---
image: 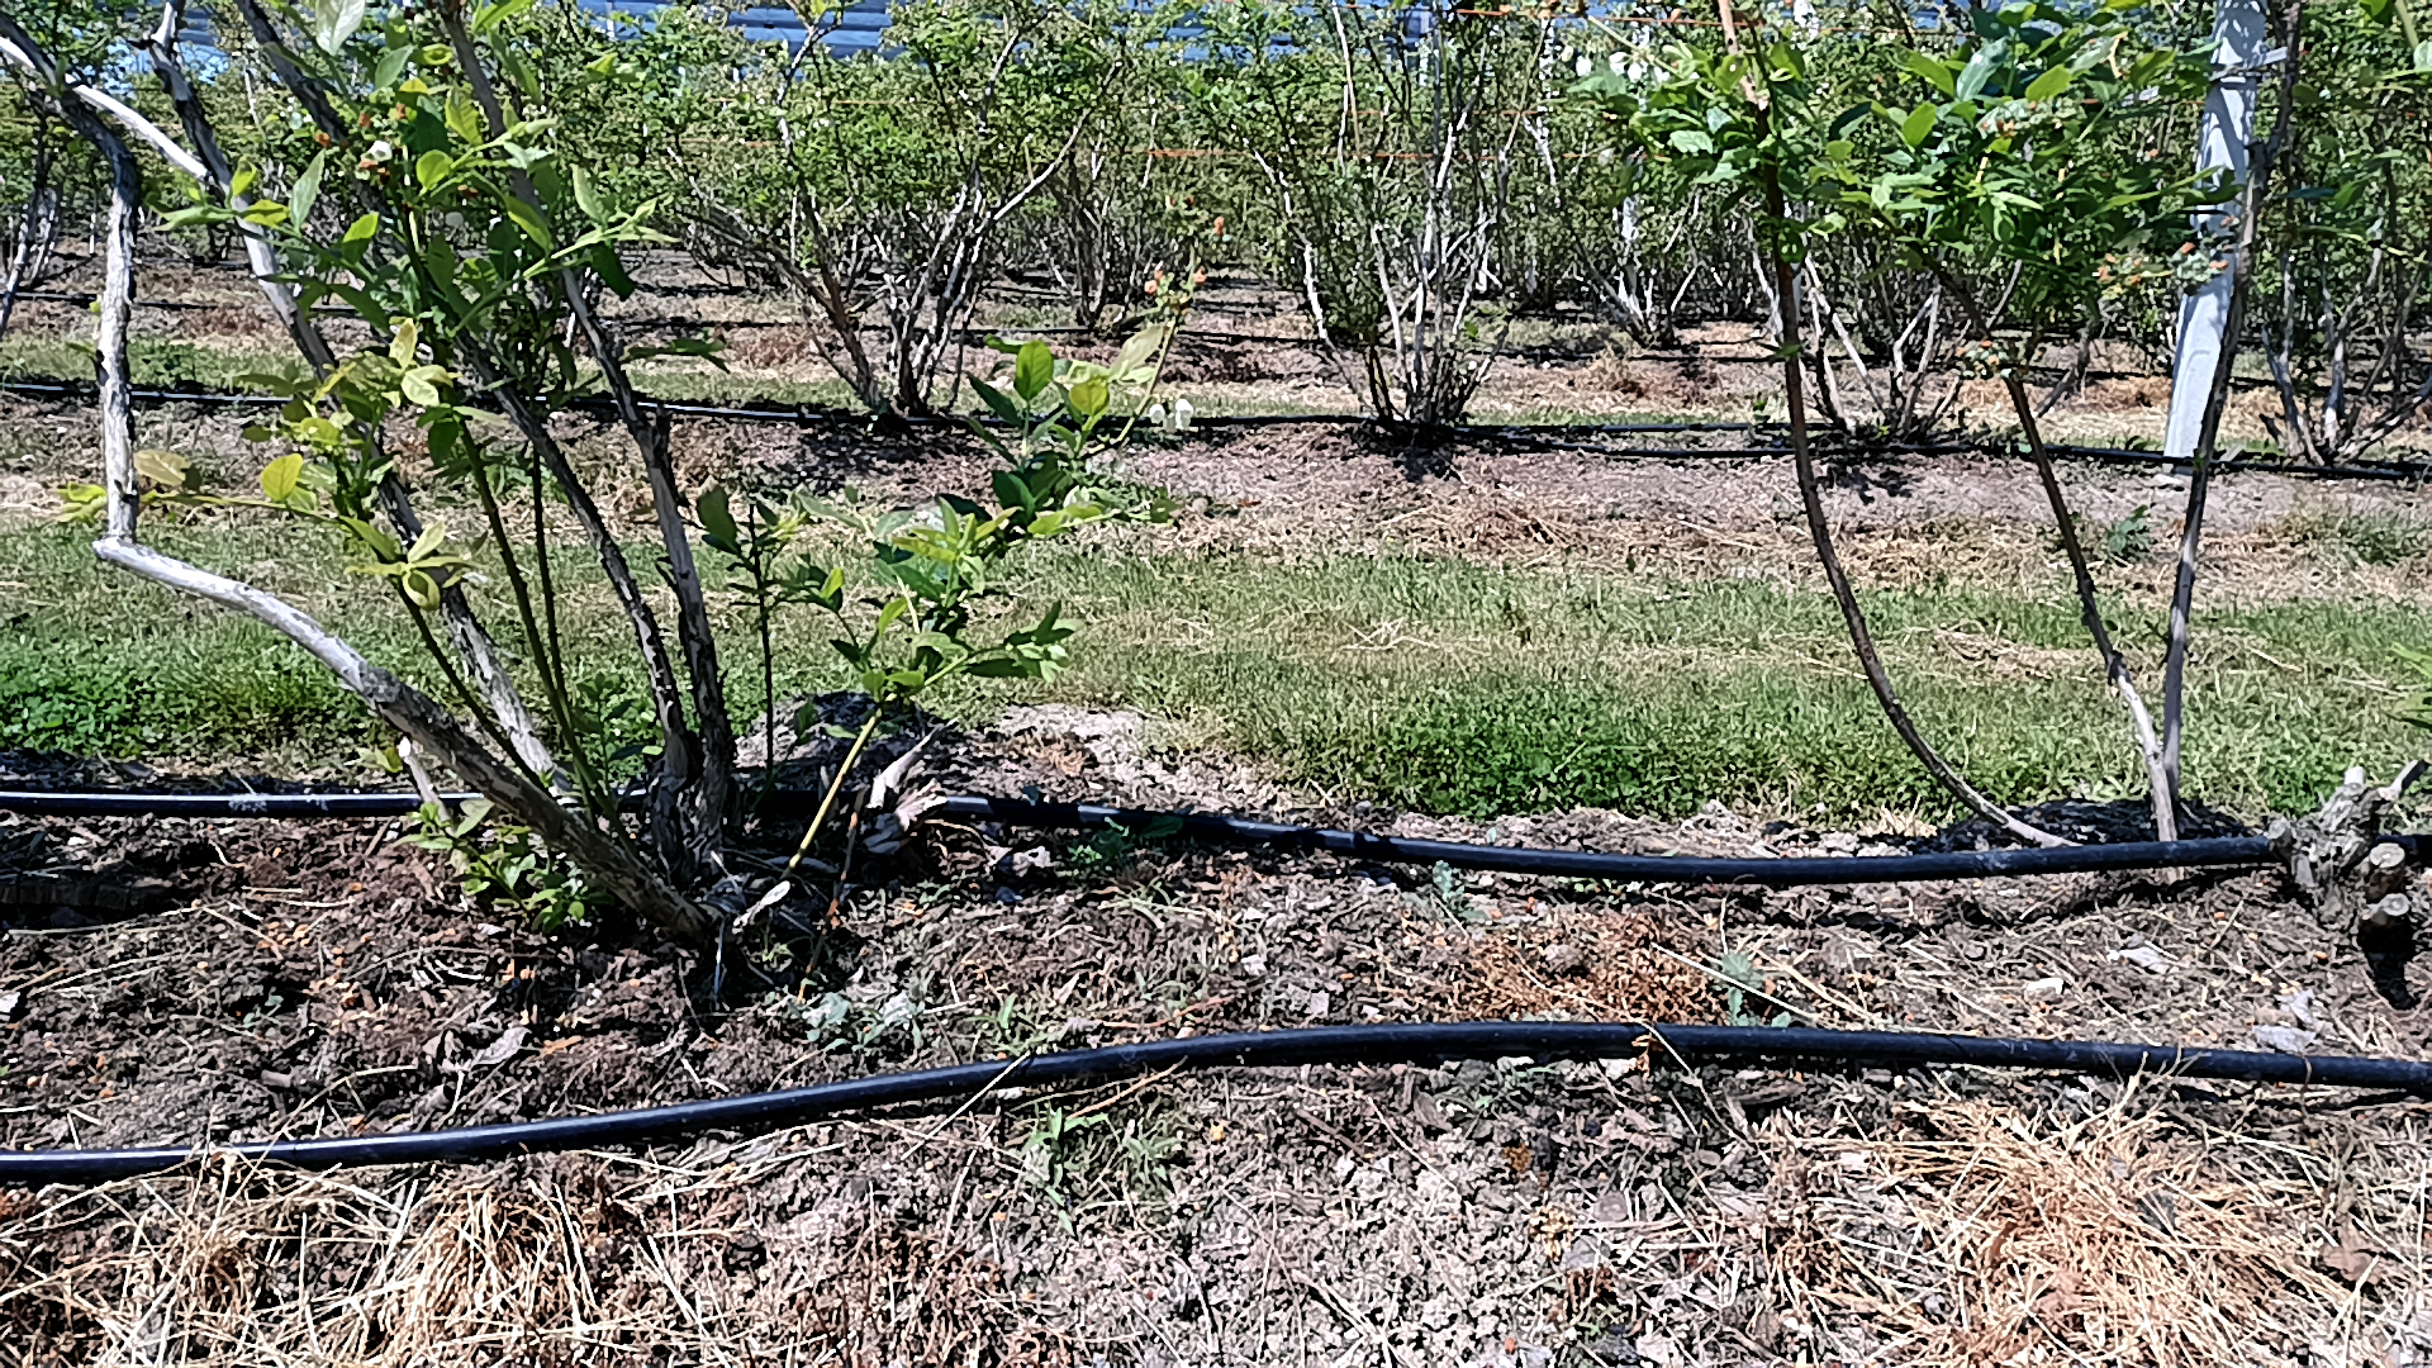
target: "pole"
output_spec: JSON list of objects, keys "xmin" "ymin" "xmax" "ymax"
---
[{"xmin": 2151, "ymin": 43, "xmax": 2269, "ymax": 497}]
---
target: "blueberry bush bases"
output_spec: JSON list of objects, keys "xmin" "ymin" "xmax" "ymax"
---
[
  {"xmin": 1049, "ymin": 265, "xmax": 1155, "ymax": 350},
  {"xmin": 799, "ymin": 329, "xmax": 999, "ymax": 459},
  {"xmin": 1317, "ymin": 332, "xmax": 1497, "ymax": 464},
  {"xmin": 2262, "ymin": 399, "xmax": 2383, "ymax": 494},
  {"xmin": 1979, "ymin": 646, "xmax": 2432, "ymax": 1036},
  {"xmin": 1772, "ymin": 329, "xmax": 1961, "ymax": 467},
  {"xmin": 1606, "ymin": 291, "xmax": 1700, "ymax": 360},
  {"xmin": 362, "ymin": 645, "xmax": 901, "ymax": 1049}
]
